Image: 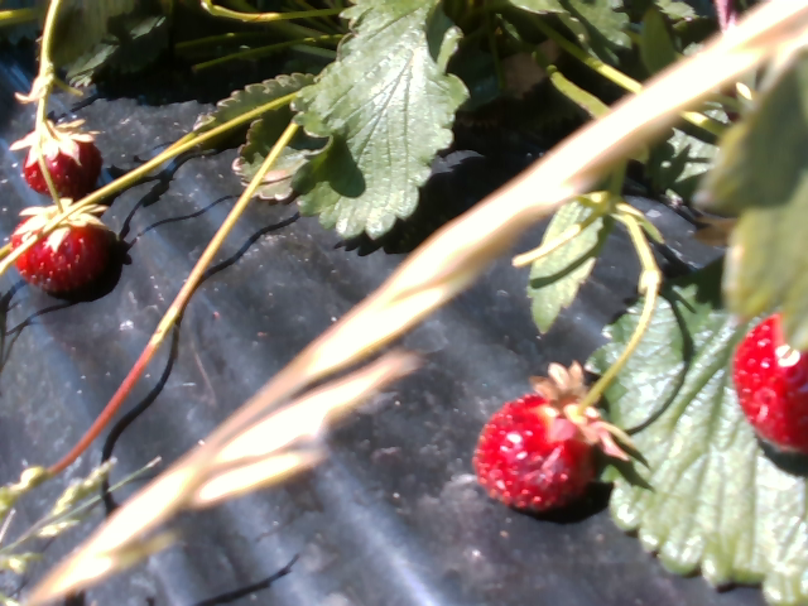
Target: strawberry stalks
[31,135,80,239]
[565,290,660,420]
[30,63,63,160]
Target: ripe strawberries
[467,398,605,521]
[14,200,109,297]
[22,128,107,196]
[728,309,808,457]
